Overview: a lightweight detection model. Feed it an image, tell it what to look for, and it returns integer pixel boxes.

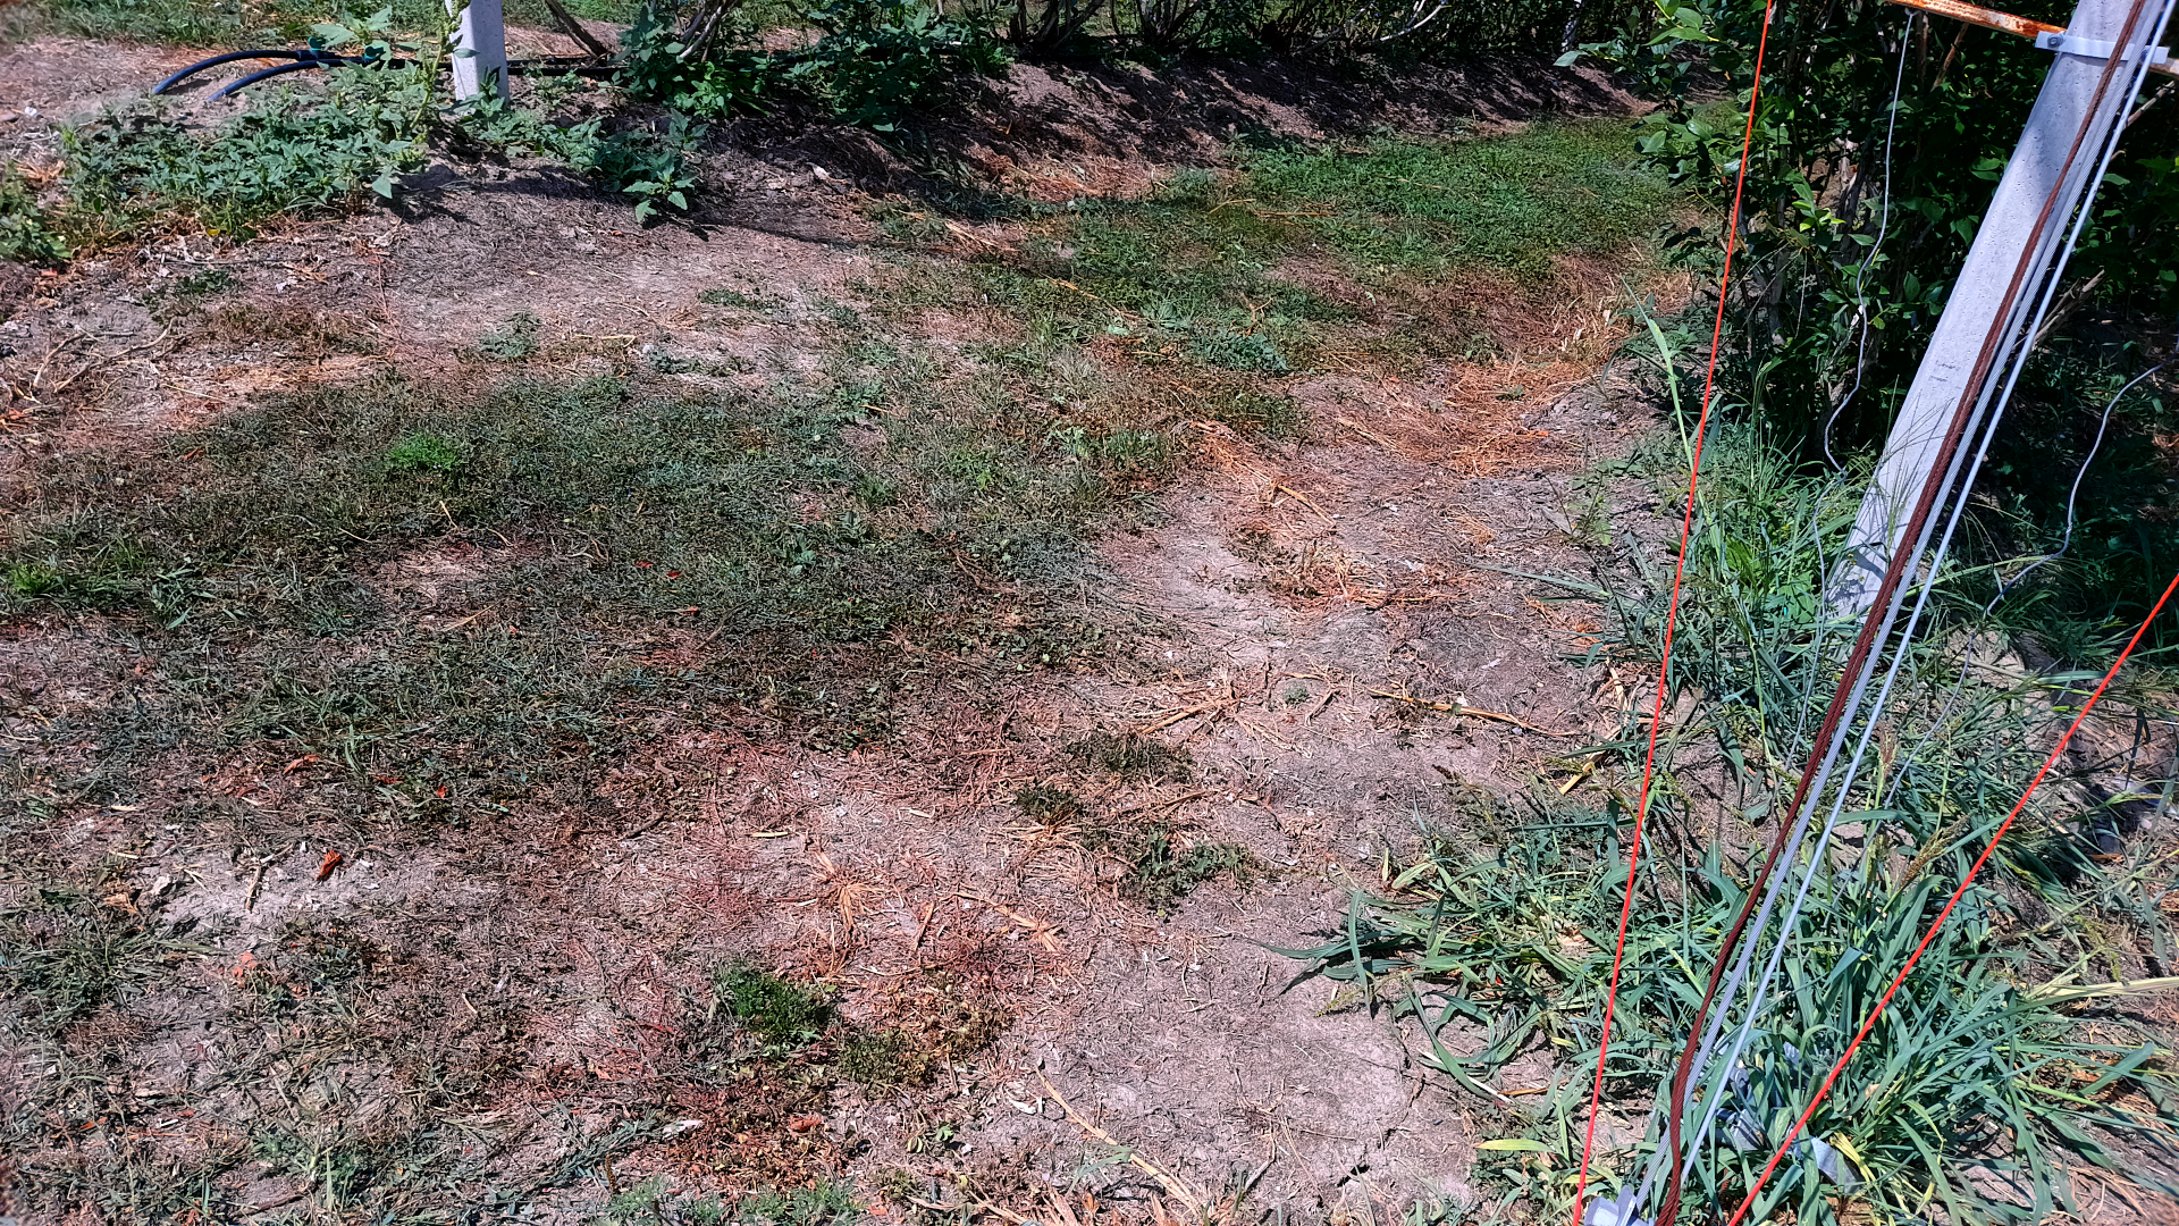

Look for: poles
[432,2,523,134]
[1827,3,2174,703]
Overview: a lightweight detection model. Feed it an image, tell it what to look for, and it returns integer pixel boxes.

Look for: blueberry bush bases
[1634,104,1815,438]
[975,3,1104,81]
[1112,4,1236,74]
[795,11,942,98]
[542,4,747,106]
